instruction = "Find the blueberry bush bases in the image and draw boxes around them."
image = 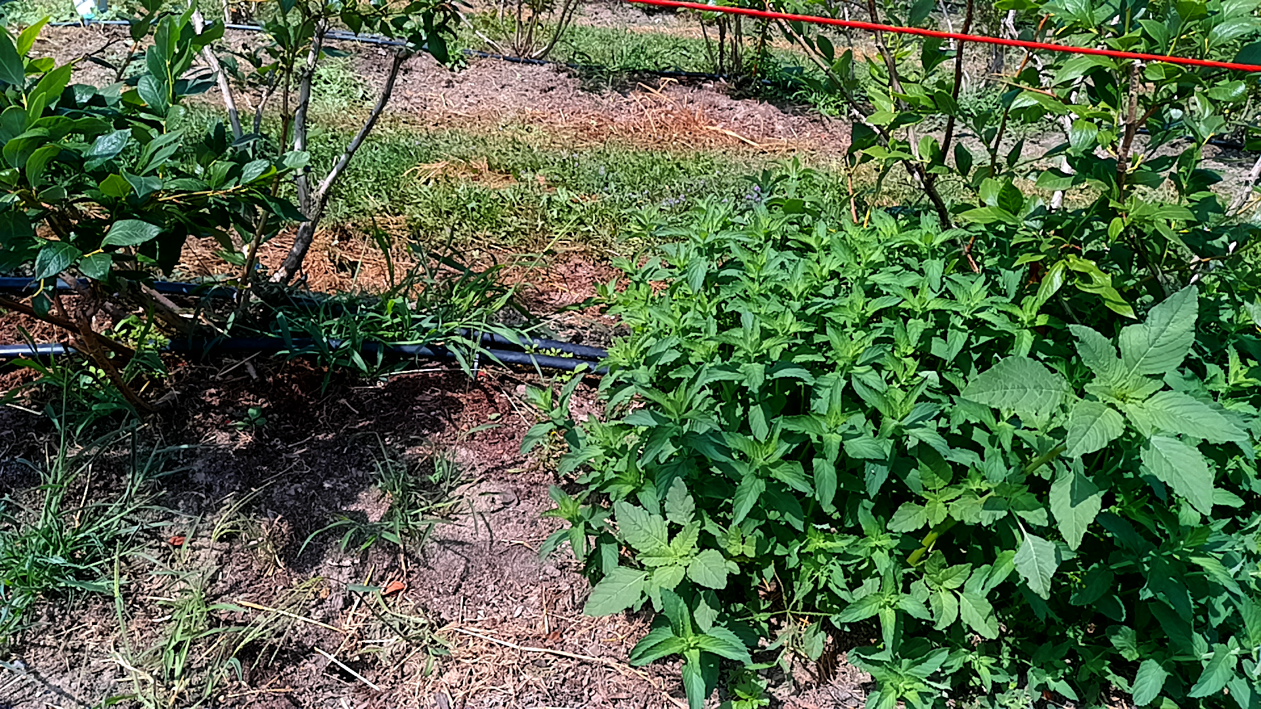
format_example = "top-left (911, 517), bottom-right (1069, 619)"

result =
top-left (902, 184), bottom-right (1230, 310)
top-left (697, 39), bottom-right (770, 93)
top-left (24, 162), bottom-right (384, 466)
top-left (484, 25), bottom-right (569, 77)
